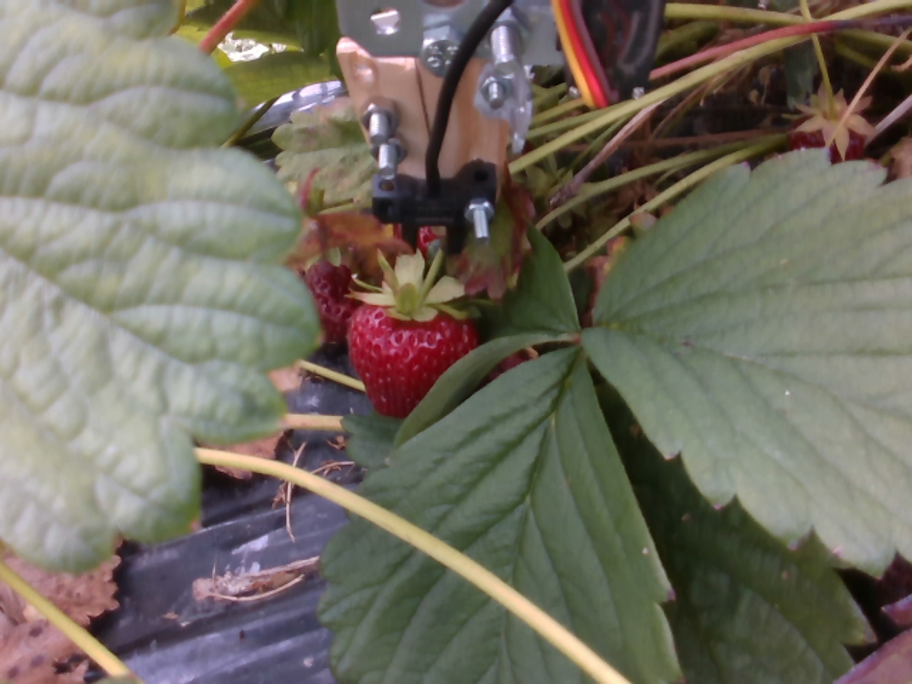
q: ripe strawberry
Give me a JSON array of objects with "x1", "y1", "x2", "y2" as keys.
[{"x1": 350, "y1": 292, "x2": 486, "y2": 413}]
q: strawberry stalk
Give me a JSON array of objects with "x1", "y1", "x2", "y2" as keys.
[{"x1": 416, "y1": 224, "x2": 457, "y2": 347}]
